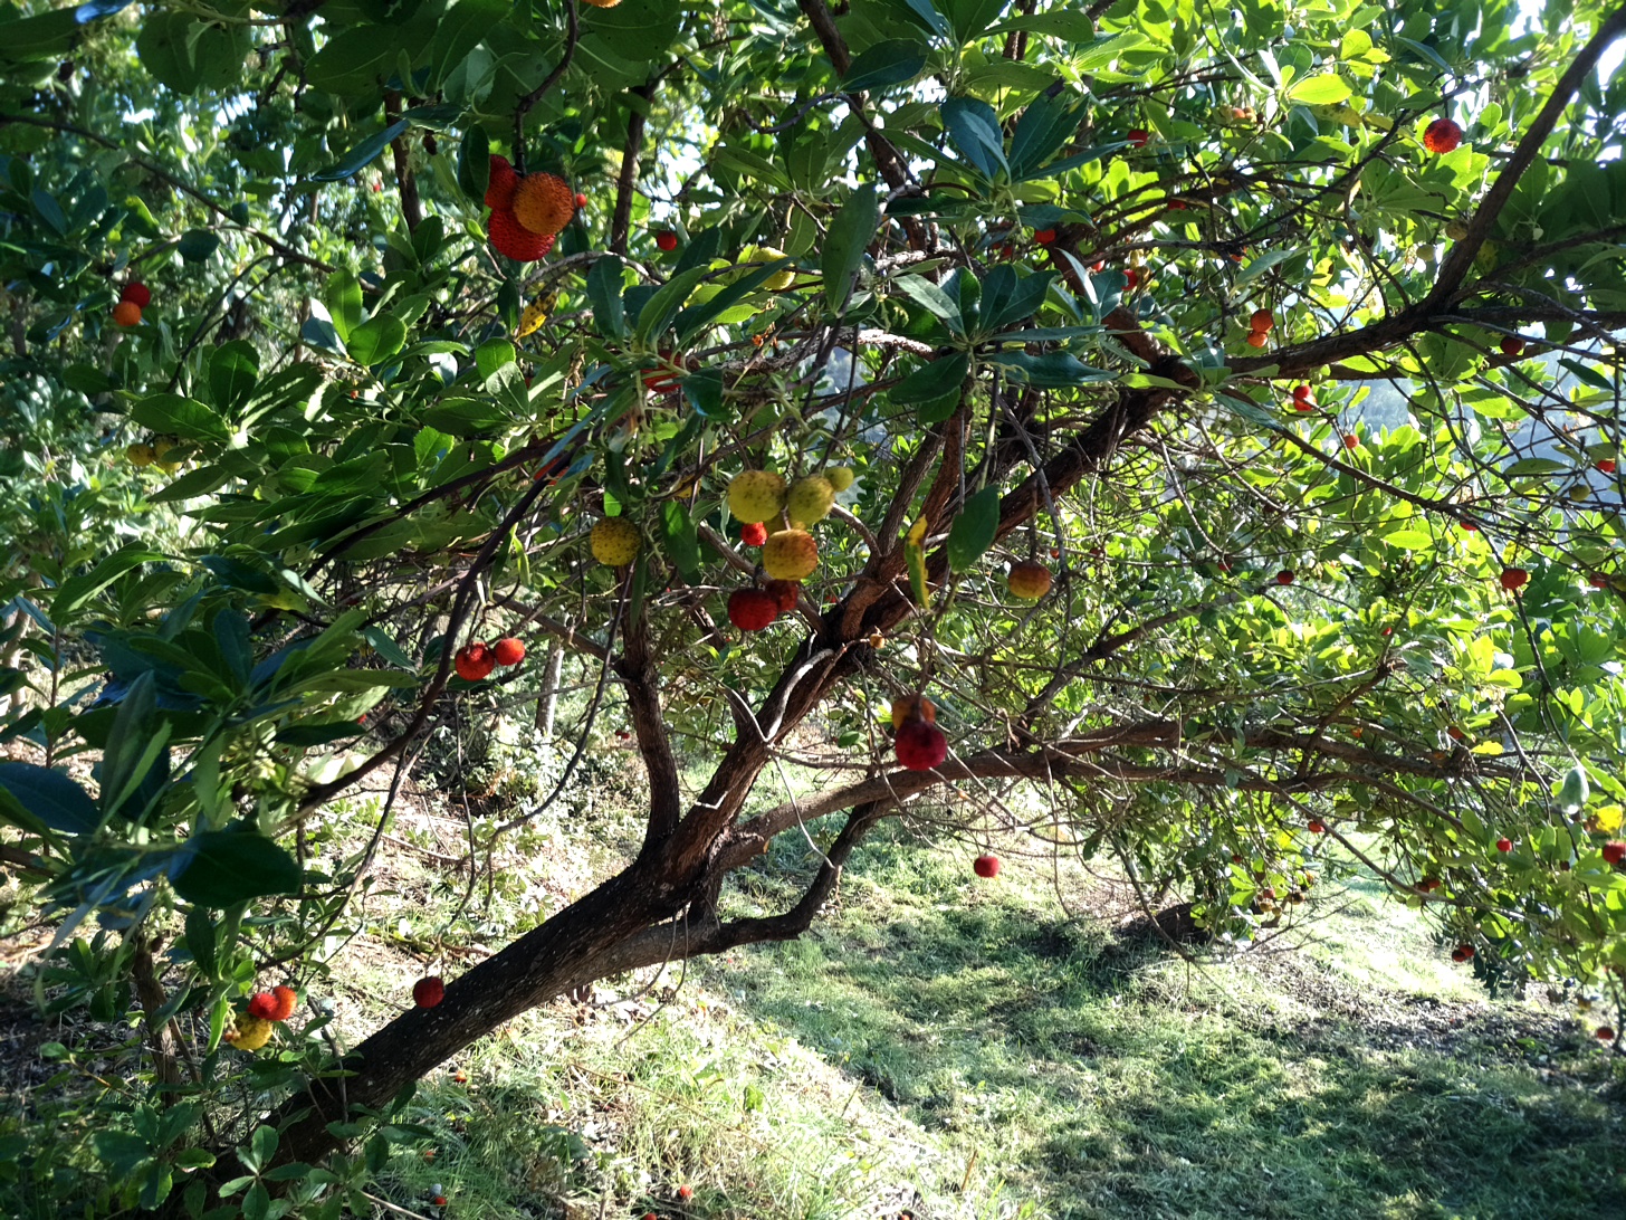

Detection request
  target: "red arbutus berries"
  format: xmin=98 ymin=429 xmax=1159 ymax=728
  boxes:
xmin=1500 ymin=568 xmax=1527 ymax=589
xmin=1450 ymin=951 xmax=1465 ymax=962
xmin=766 ymin=578 xmax=802 ymax=613
xmin=1589 ymin=569 xmax=1607 ymax=587
xmin=1448 ymin=724 xmax=1464 ymax=740
xmin=1308 ymin=820 xmax=1321 ymax=832
xmin=727 ymin=588 xmax=778 ymax=629
xmin=896 ymin=723 xmax=947 ymax=768
xmin=656 ymin=232 xmax=677 ymax=253
xmin=1344 ymin=433 xmax=1358 ymax=449
xmin=1424 ymin=118 xmax=1460 ymax=154
xmin=1293 ymin=383 xmax=1312 ymax=400
xmin=272 ymin=986 xmax=302 ymax=1021
xmin=1294 ymin=396 xmax=1315 ymax=412
xmin=1249 ymin=308 xmax=1276 ymax=332
xmin=1595 ymin=457 xmax=1616 ymax=473
xmin=455 ymin=639 xmax=494 ymax=680
xmin=1500 ymin=335 xmax=1522 ymax=355
xmin=639 ymin=347 xmax=686 ymax=395
xmin=464 ymin=149 xmax=518 ymax=211
xmin=252 ymin=989 xmax=278 ymax=1020
xmin=1217 ymin=556 xmax=1232 ymax=571
xmin=1602 ymin=840 xmax=1626 ymax=864
xmin=495 ymin=636 xmax=529 ymax=664
xmin=414 ymin=976 xmax=444 ymax=1009
xmin=974 ymin=856 xmax=1000 ymax=877
xmin=1597 ymin=1026 xmax=1613 ymax=1040
xmin=1496 ymin=837 xmax=1513 ymax=852
xmin=1127 ymin=125 xmax=1147 ymax=150
xmin=743 ymin=523 xmax=767 ymax=547
xmin=1033 ymin=226 xmax=1056 ymax=242
xmin=1119 ymin=266 xmax=1138 ymax=290
xmin=486 ymin=206 xmax=554 ymax=260
xmin=1457 ymin=513 xmax=1479 ymax=533
xmin=1460 ymin=945 xmax=1476 ymax=957
xmin=1276 ymin=569 xmax=1295 ymax=585
xmin=122 ymin=282 xmax=151 ymax=307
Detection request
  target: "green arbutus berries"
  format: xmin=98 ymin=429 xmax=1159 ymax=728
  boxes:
xmin=1416 ymin=243 xmax=1437 ymax=262
xmin=787 ymin=471 xmax=835 ymax=523
xmin=824 ymin=465 xmax=854 ymax=493
xmin=749 ymin=246 xmax=796 ymax=290
xmin=154 ymin=437 xmax=176 ymax=457
xmin=725 ymin=467 xmax=782 ymax=523
xmin=128 ymin=442 xmax=153 ymax=464
xmin=1446 ymin=219 xmax=1469 ymax=240
xmin=1570 ymin=484 xmax=1589 ymax=504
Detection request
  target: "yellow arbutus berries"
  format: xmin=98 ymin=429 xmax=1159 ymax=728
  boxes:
xmin=589 ymin=514 xmax=641 ymax=566
xmin=1007 ymin=558 xmax=1051 ymax=599
xmin=1247 ymin=330 xmax=1270 ymax=349
xmin=890 ymin=693 xmax=936 ymax=735
xmin=114 ymin=302 xmax=141 ymax=326
xmin=231 ymin=1006 xmax=272 ymax=1050
xmin=513 ymin=173 xmax=575 ymax=232
xmin=762 ymin=529 xmax=819 ymax=582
